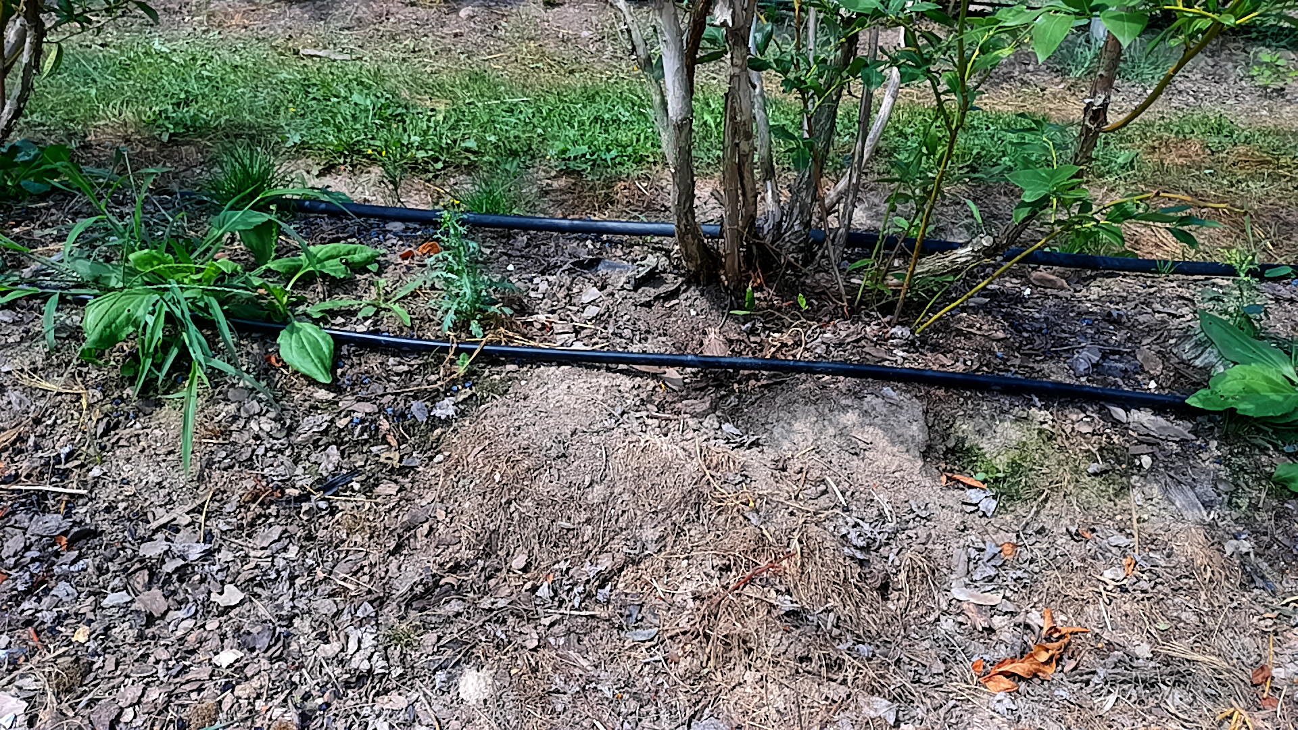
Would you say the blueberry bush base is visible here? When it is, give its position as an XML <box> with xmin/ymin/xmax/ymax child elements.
<box><xmin>627</xmin><ymin>89</ymin><xmax>978</xmax><ymax>360</ymax></box>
